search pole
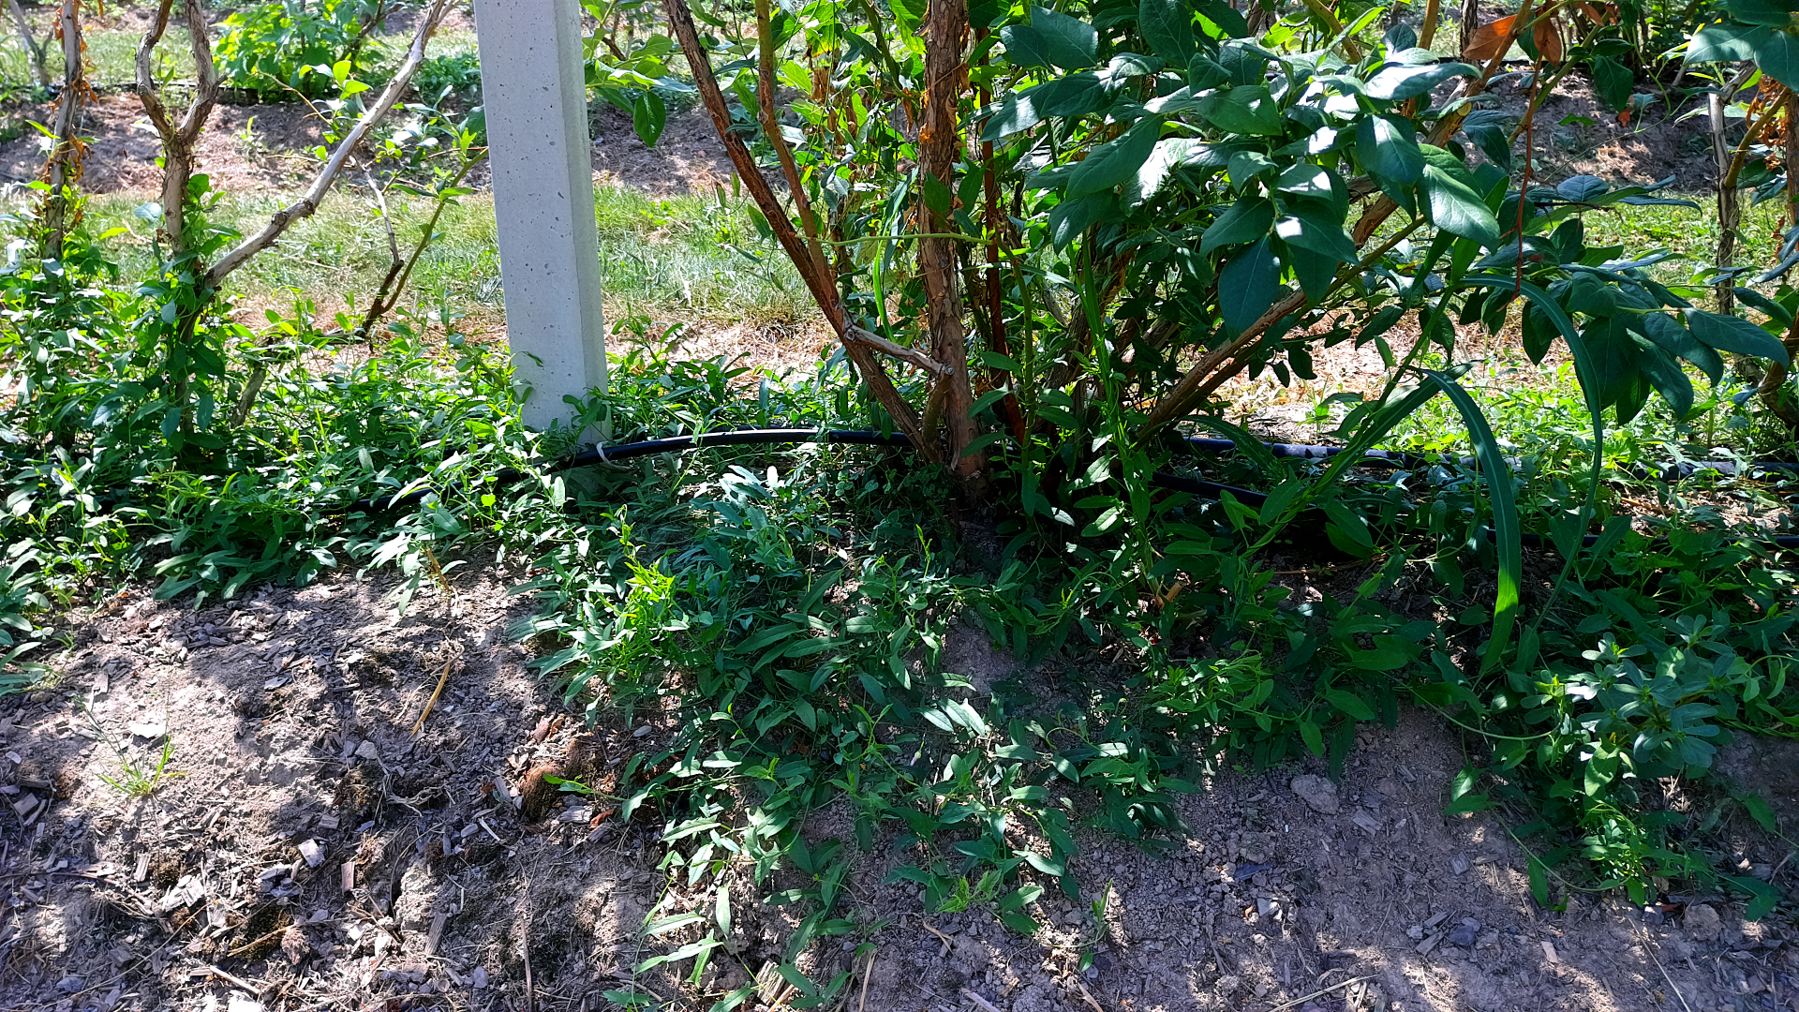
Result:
[469,37,644,443]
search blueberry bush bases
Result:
[796,270,1303,603]
[4,261,284,603]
